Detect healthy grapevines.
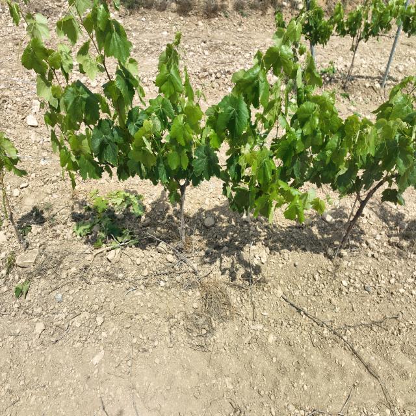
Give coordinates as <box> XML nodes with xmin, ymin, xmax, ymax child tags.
<box><xmin>16</xmin><ymin>0</ymin><xmax>281</xmax><ymax>267</ymax></box>
<box><xmin>280</xmin><ymin>90</ymin><xmax>416</xmax><ymax>266</ymax></box>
